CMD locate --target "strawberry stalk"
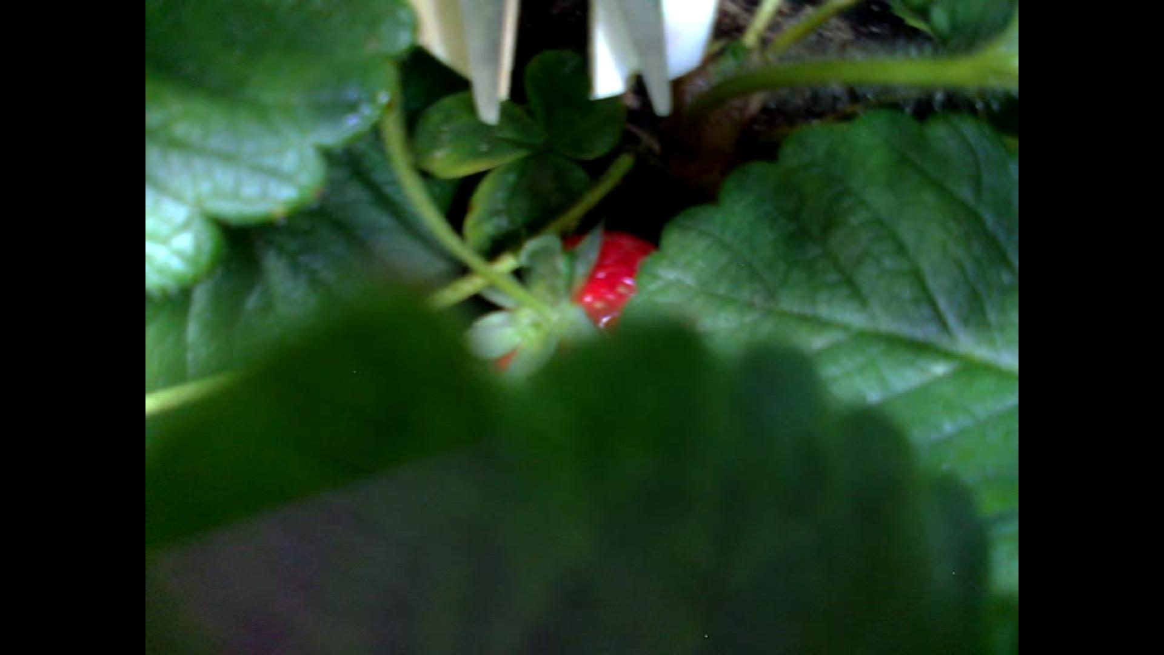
[424,233,557,334]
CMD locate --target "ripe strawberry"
[538,227,671,350]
